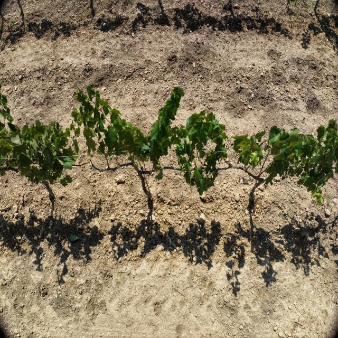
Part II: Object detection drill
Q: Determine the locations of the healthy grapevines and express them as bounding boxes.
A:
[0,91,84,212]
[198,115,338,224]
[71,80,208,226]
